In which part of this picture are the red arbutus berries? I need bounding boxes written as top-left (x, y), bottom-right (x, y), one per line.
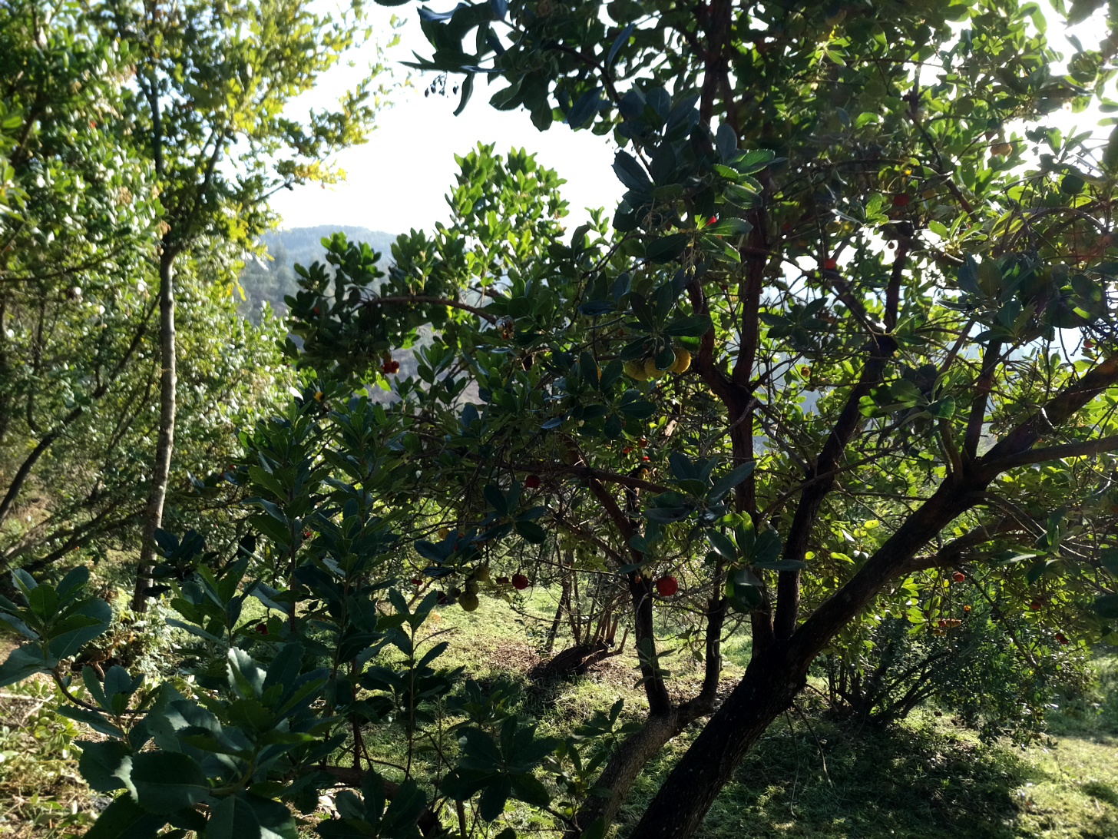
top-left (417, 580), bottom-right (423, 585)
top-left (641, 456), bottom-right (650, 461)
top-left (385, 363), bottom-right (393, 370)
top-left (256, 623), bottom-right (269, 634)
top-left (306, 532), bottom-right (312, 537)
top-left (1083, 338), bottom-right (1094, 347)
top-left (954, 572), bottom-right (965, 582)
top-left (412, 578), bottom-right (417, 584)
top-left (893, 193), bottom-right (910, 206)
top-left (1061, 638), bottom-right (1067, 644)
top-left (1030, 601), bottom-right (1040, 610)
top-left (938, 620), bottom-right (946, 627)
top-left (512, 573), bottom-right (528, 590)
top-left (393, 360), bottom-right (400, 368)
top-left (638, 438), bottom-right (647, 448)
top-left (526, 474), bottom-right (540, 487)
top-left (623, 447), bottom-right (630, 453)
top-left (824, 258), bottom-right (836, 270)
top-left (1055, 632), bottom-right (1063, 640)
top-left (657, 576), bottom-right (679, 596)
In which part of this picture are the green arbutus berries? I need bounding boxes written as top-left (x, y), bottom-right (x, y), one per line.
top-left (475, 567), bottom-right (489, 581)
top-left (999, 141), bottom-right (1010, 153)
top-left (465, 583), bottom-right (480, 595)
top-left (922, 186), bottom-right (936, 198)
top-left (934, 629), bottom-right (941, 635)
top-left (643, 355), bottom-right (667, 381)
top-left (946, 621), bottom-right (953, 627)
top-left (954, 620), bottom-right (961, 626)
top-left (826, 220), bottom-right (843, 233)
top-left (940, 629), bottom-right (946, 637)
top-left (459, 591), bottom-right (479, 612)
top-left (625, 357), bottom-right (650, 382)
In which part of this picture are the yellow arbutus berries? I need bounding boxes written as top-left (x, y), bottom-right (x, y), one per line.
top-left (671, 344), bottom-right (694, 375)
top-left (801, 368), bottom-right (811, 376)
top-left (964, 605), bottom-right (971, 613)
top-left (438, 527), bottom-right (450, 540)
top-left (315, 391), bottom-right (324, 401)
